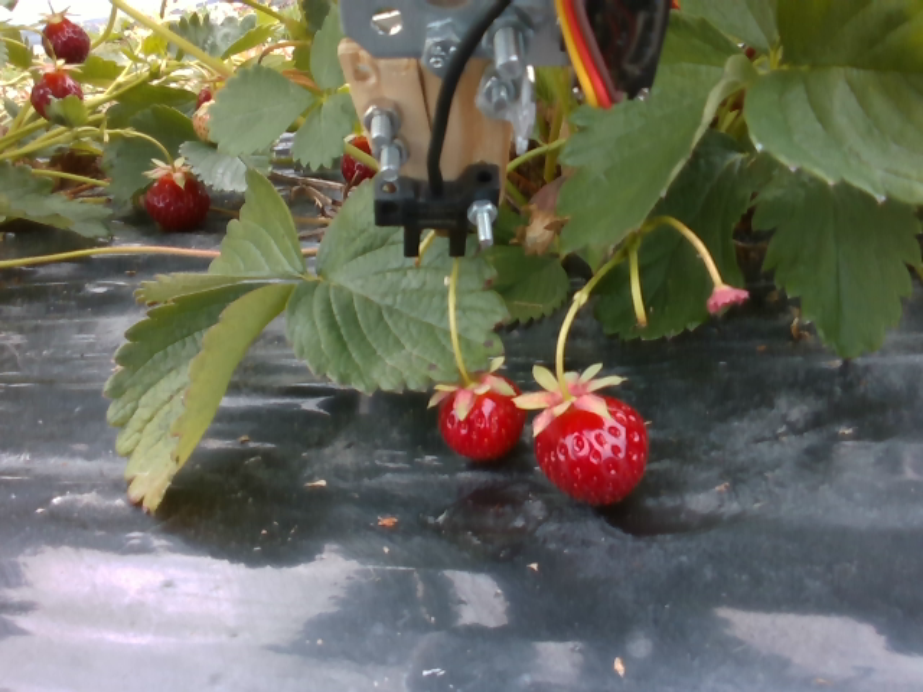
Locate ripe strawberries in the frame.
[347,132,381,183]
[35,75,81,123]
[143,165,199,224]
[440,373,527,463]
[46,15,89,68]
[527,386,657,512]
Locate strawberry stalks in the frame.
[37,1,65,30]
[447,251,468,402]
[554,263,616,418]
[101,131,181,180]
